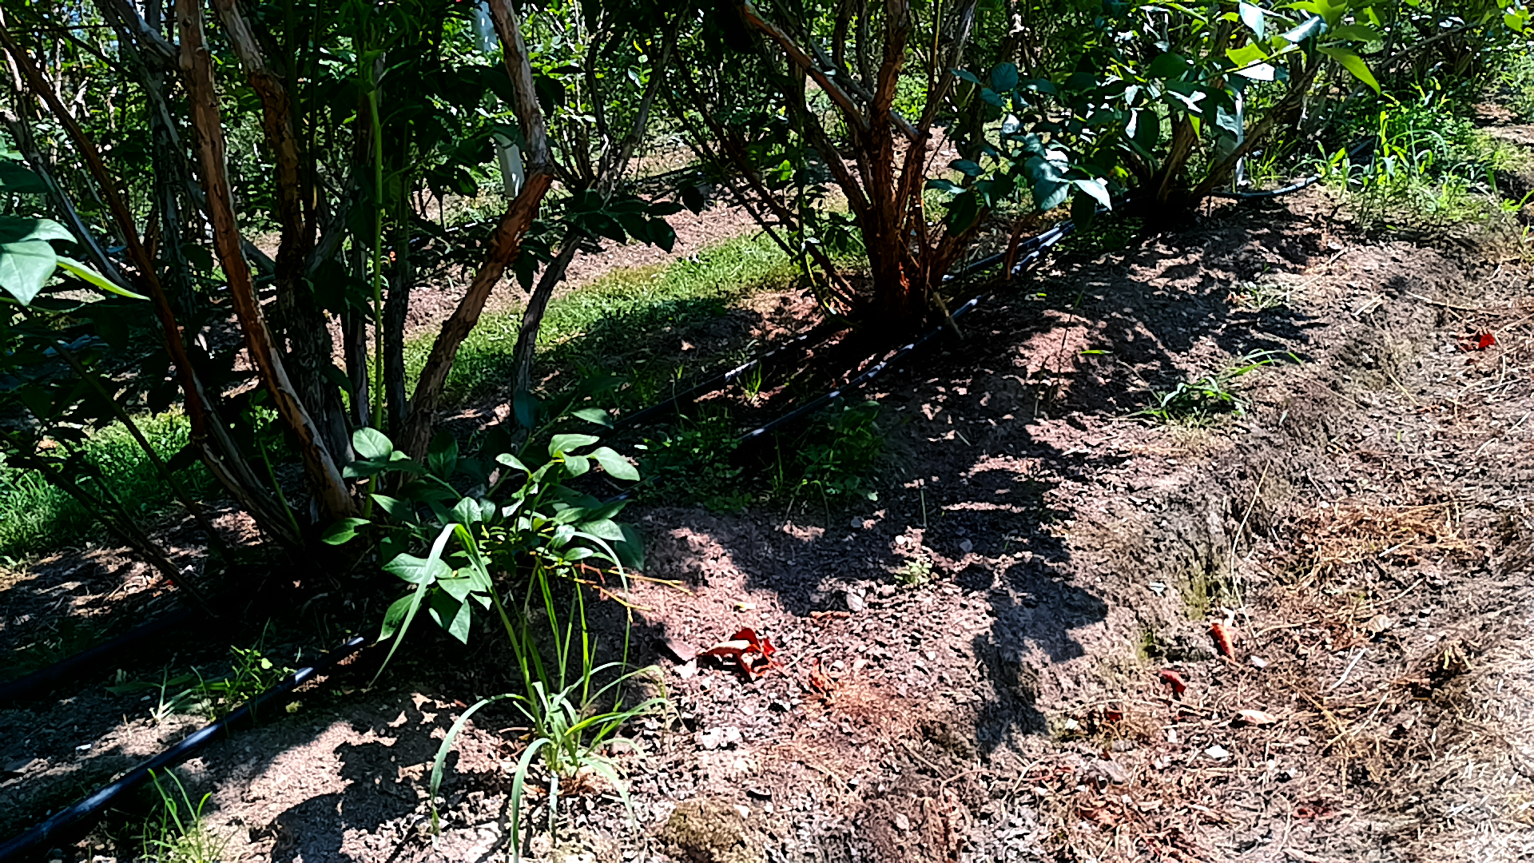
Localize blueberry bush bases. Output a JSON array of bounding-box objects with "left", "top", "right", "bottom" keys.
[
  {"left": 108, "top": 389, "right": 574, "bottom": 735},
  {"left": 1051, "top": 74, "right": 1253, "bottom": 270},
  {"left": 1264, "top": 24, "right": 1360, "bottom": 185},
  {"left": 1377, "top": 17, "right": 1489, "bottom": 151},
  {"left": 747, "top": 160, "right": 1035, "bottom": 411}
]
